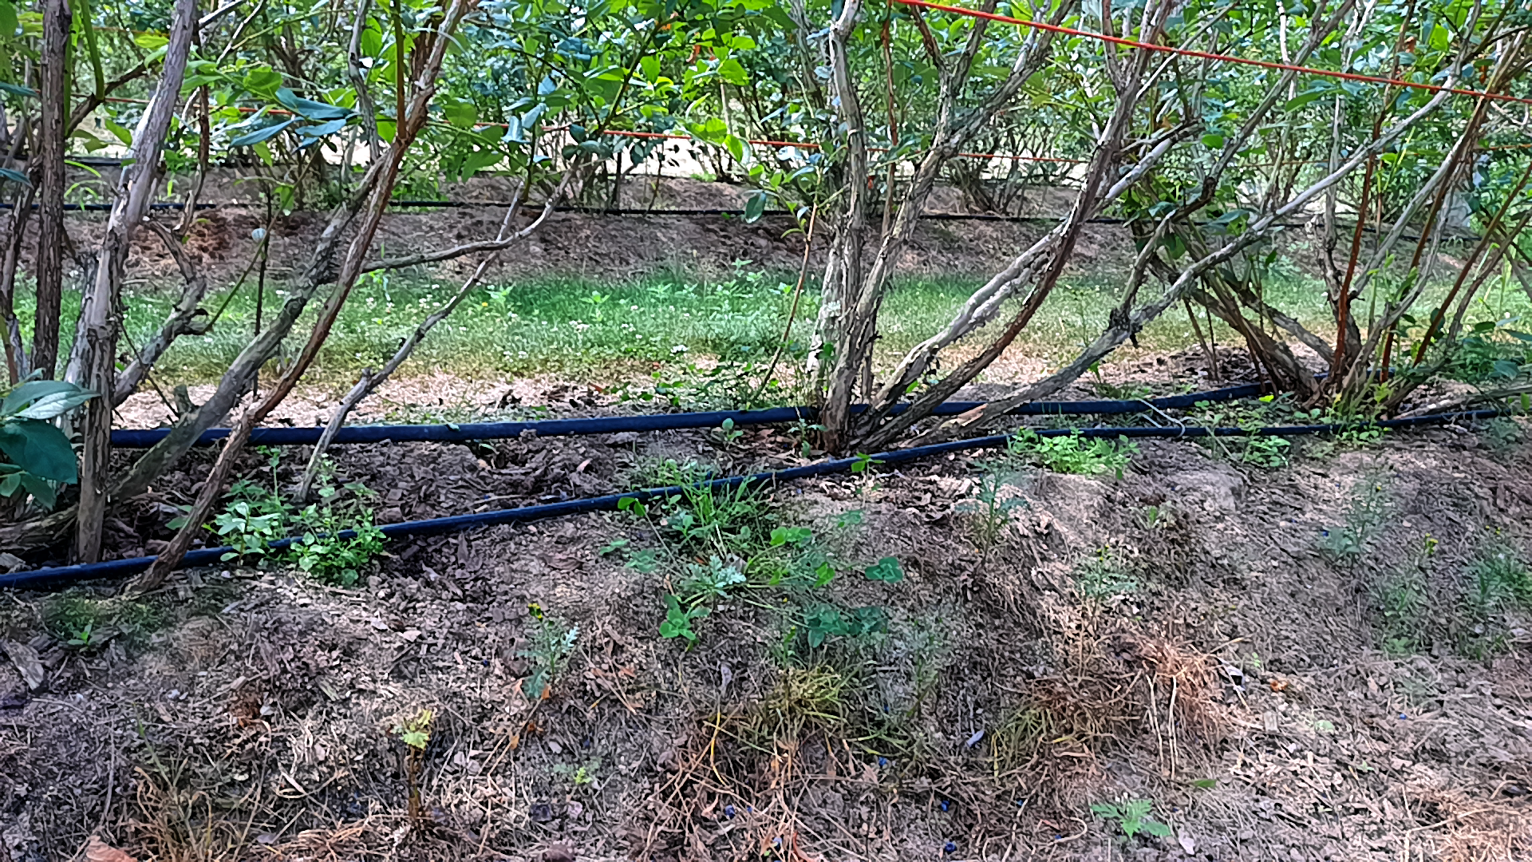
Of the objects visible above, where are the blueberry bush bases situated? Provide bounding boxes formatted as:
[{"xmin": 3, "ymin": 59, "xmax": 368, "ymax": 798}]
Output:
[
  {"xmin": 521, "ymin": 167, "xmax": 659, "ymax": 227},
  {"xmin": 2, "ymin": 254, "xmax": 371, "ymax": 643},
  {"xmin": 1189, "ymin": 311, "xmax": 1479, "ymax": 459},
  {"xmin": 937, "ymin": 188, "xmax": 1049, "ymax": 239},
  {"xmin": 760, "ymin": 264, "xmax": 1054, "ymax": 489}
]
